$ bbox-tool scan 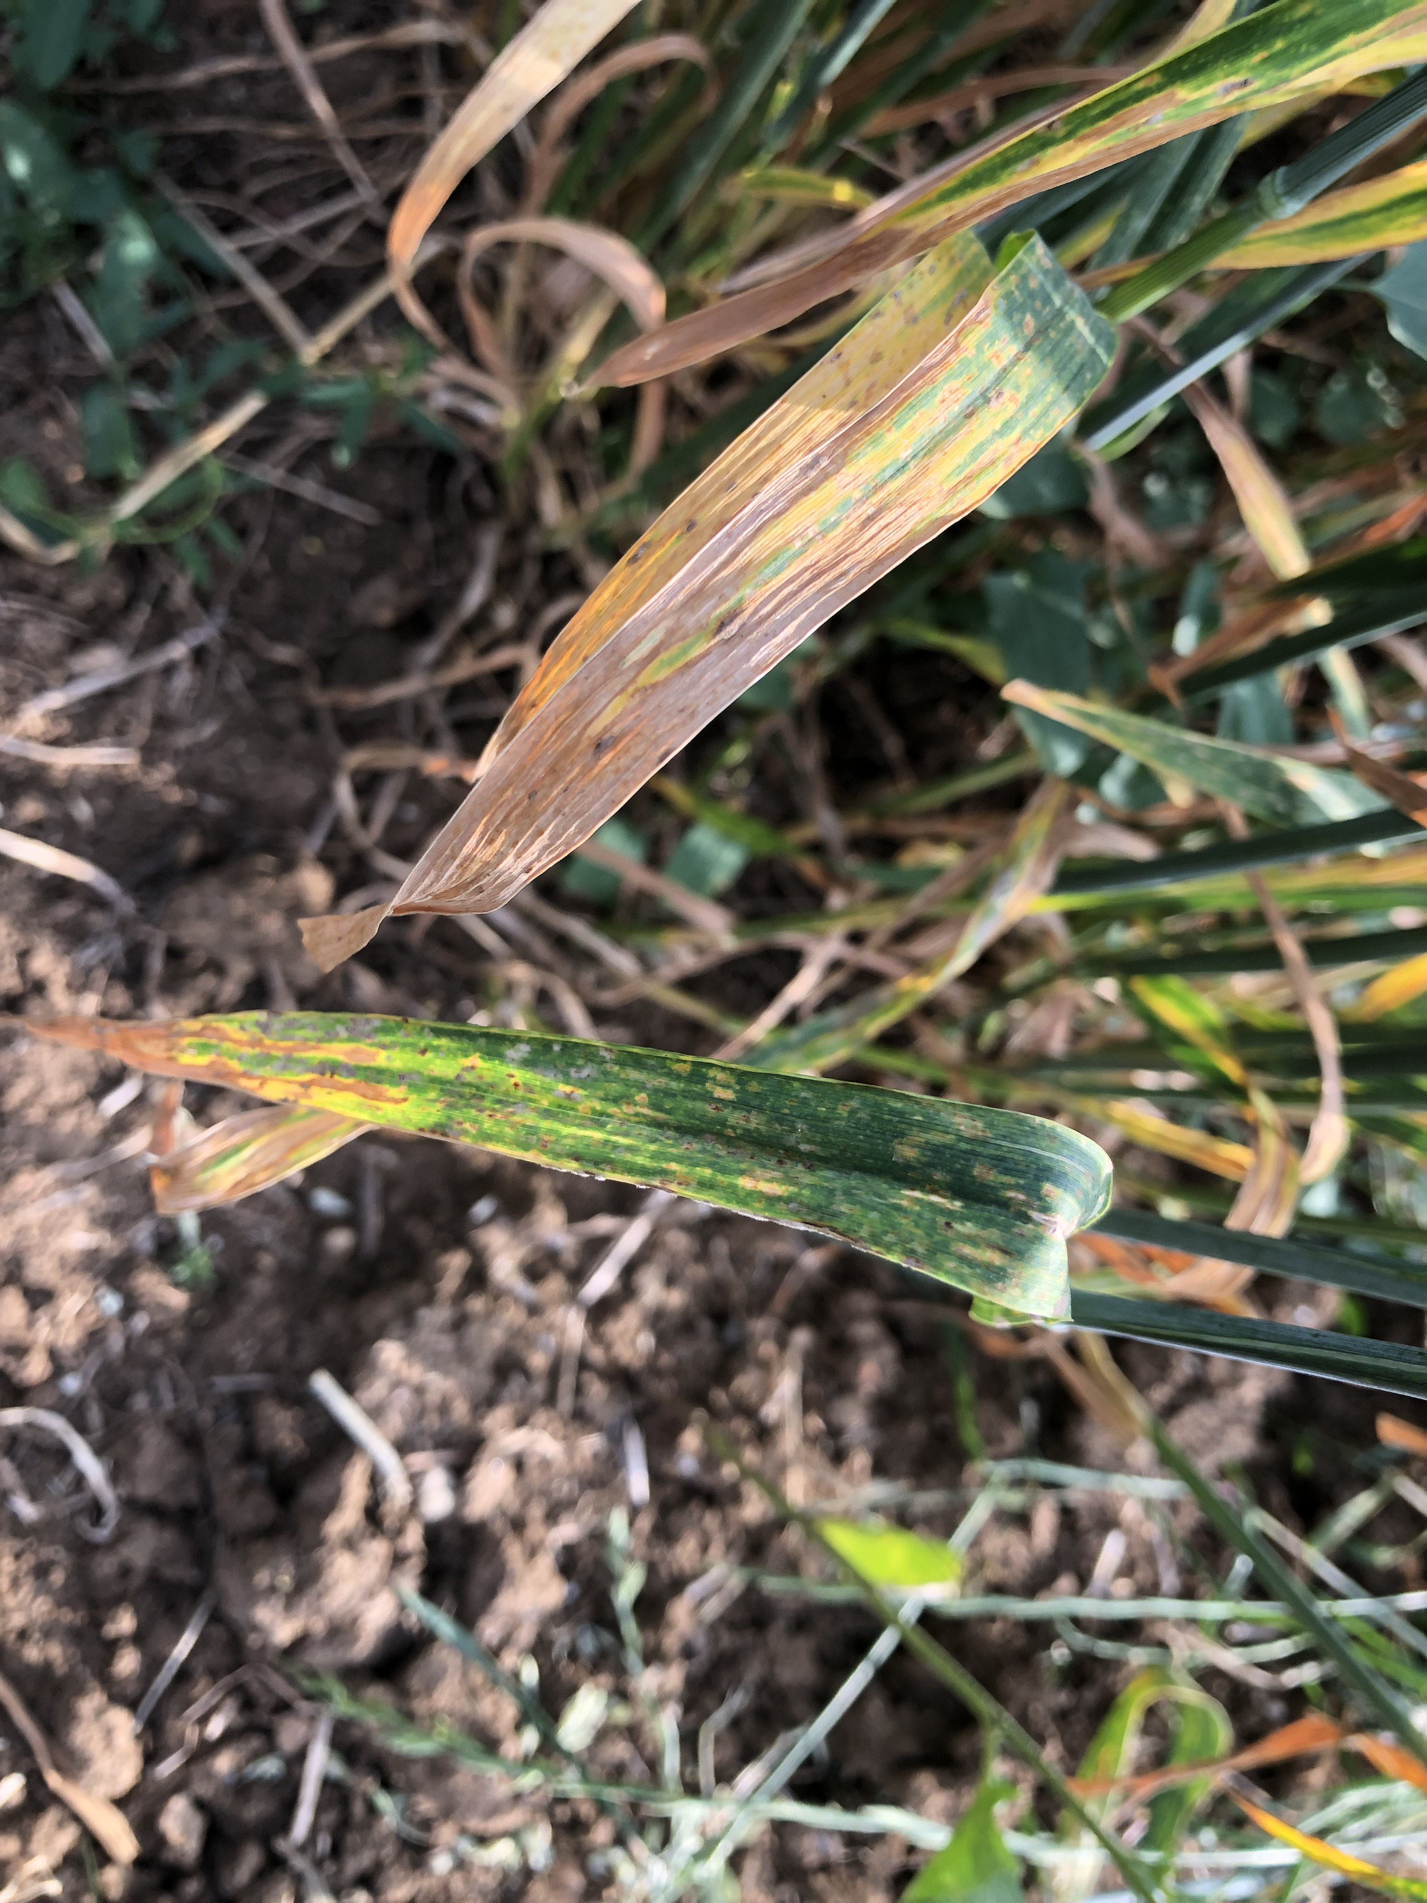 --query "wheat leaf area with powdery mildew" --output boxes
[456,1019,1106,1314]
